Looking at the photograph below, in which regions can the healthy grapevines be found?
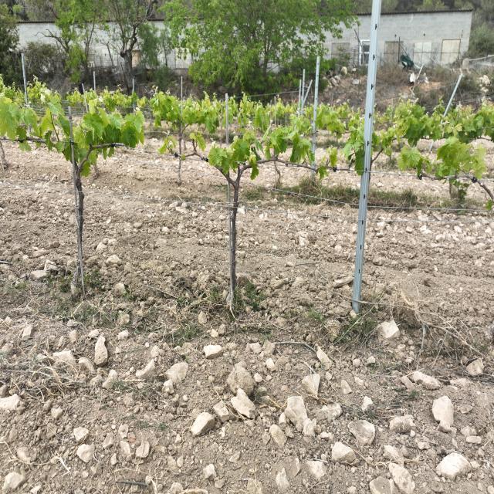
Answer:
[157,118,346,328]
[0,102,157,304]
